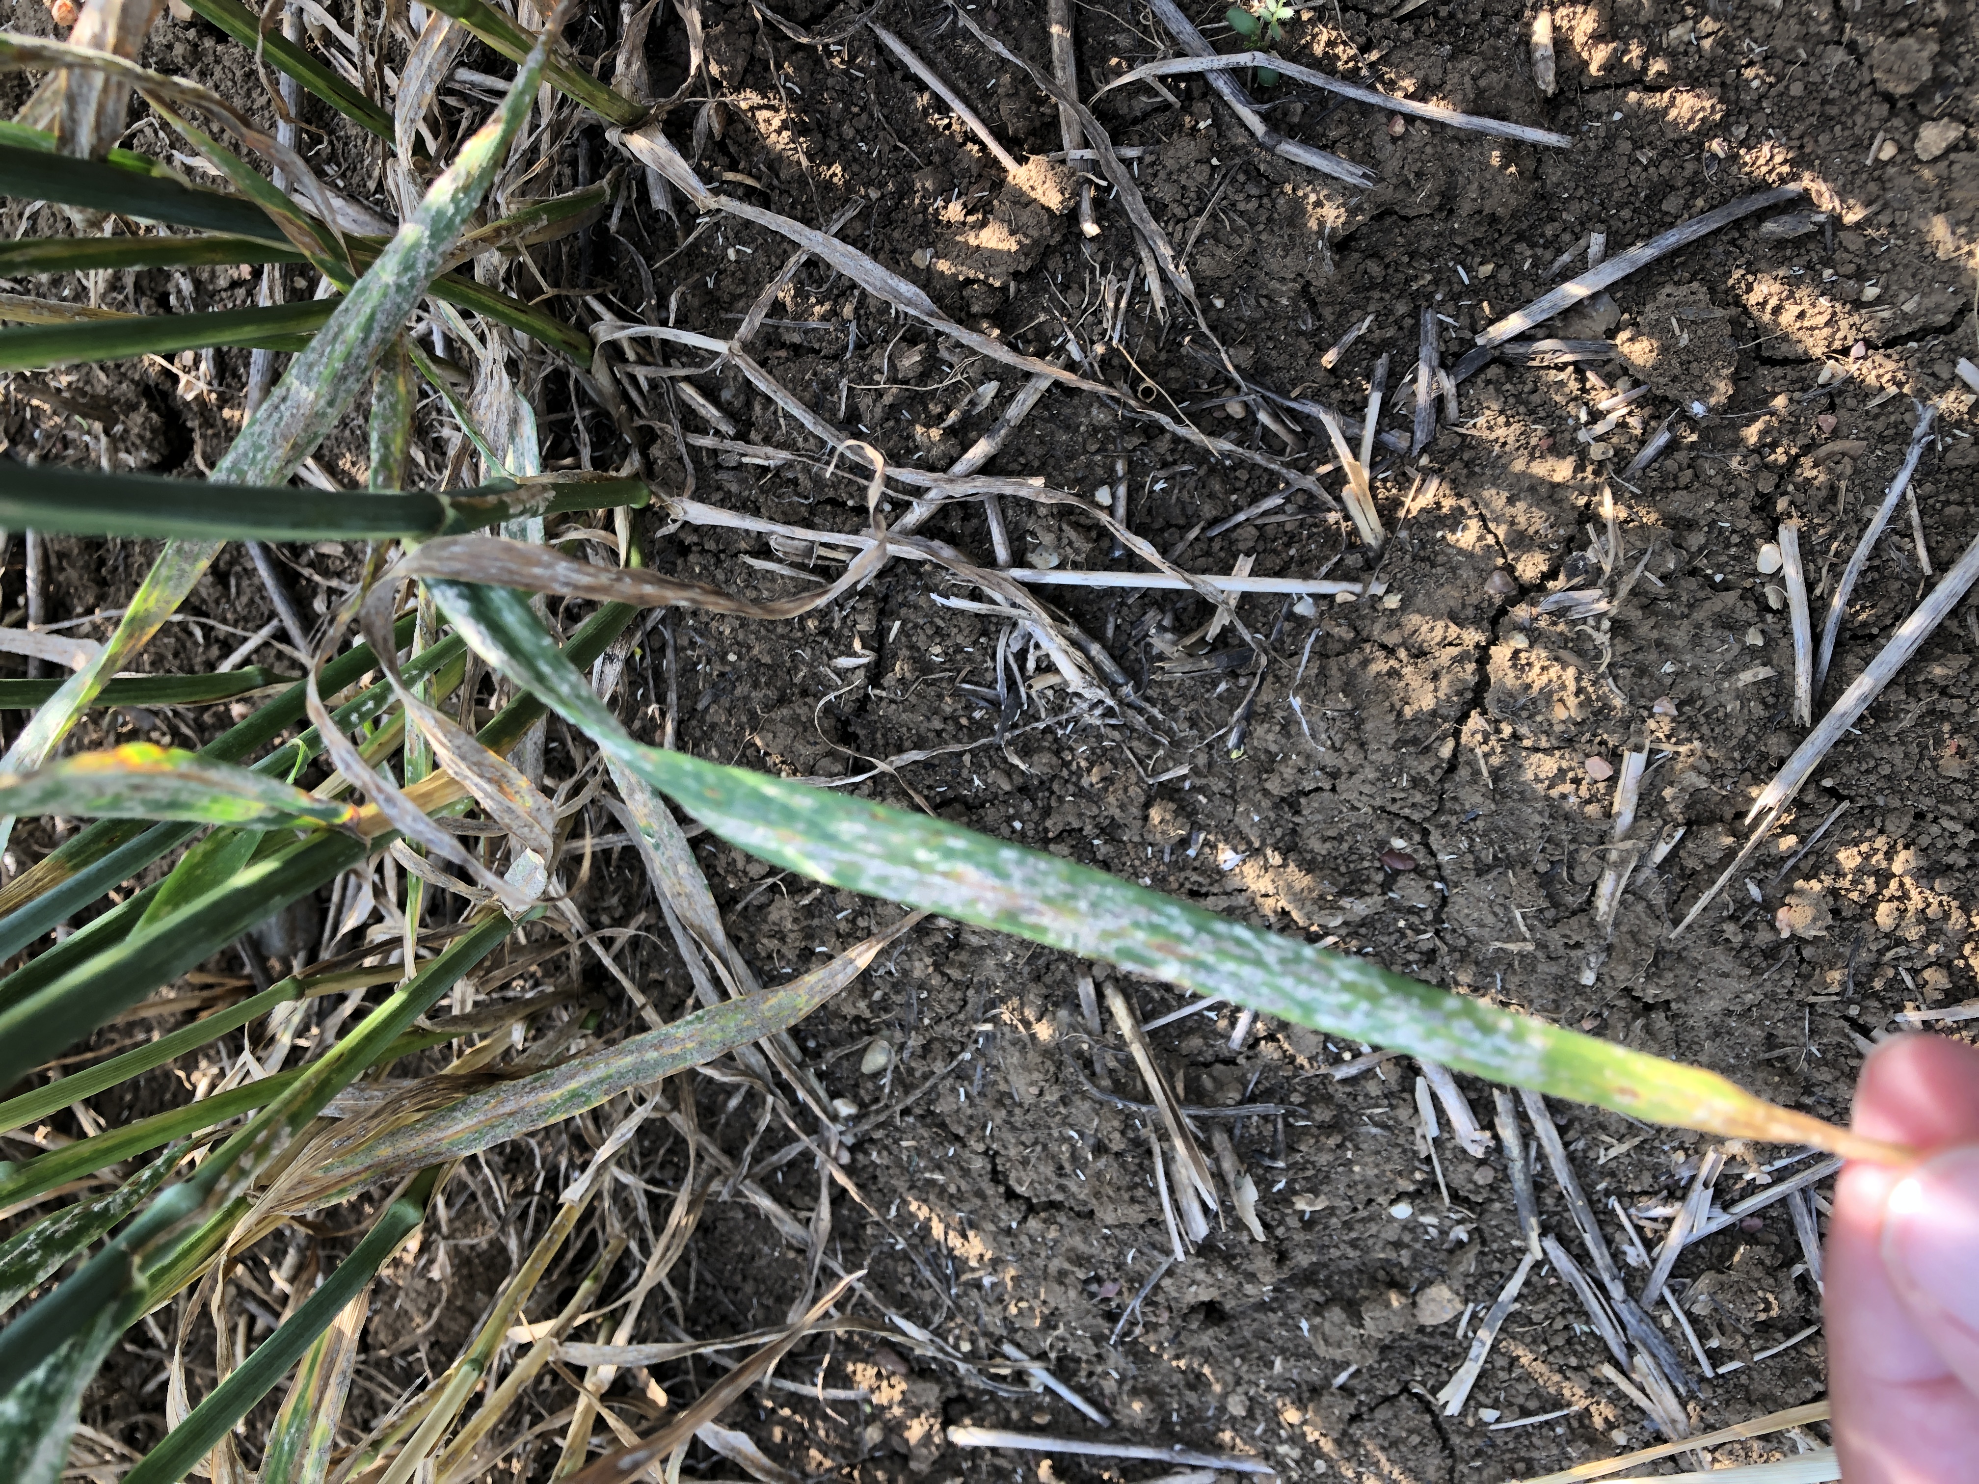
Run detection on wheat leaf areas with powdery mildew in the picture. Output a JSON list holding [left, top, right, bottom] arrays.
[[372, 17, 489, 208], [20, 732, 323, 879], [189, 91, 544, 513], [459, 592, 1743, 1181]]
